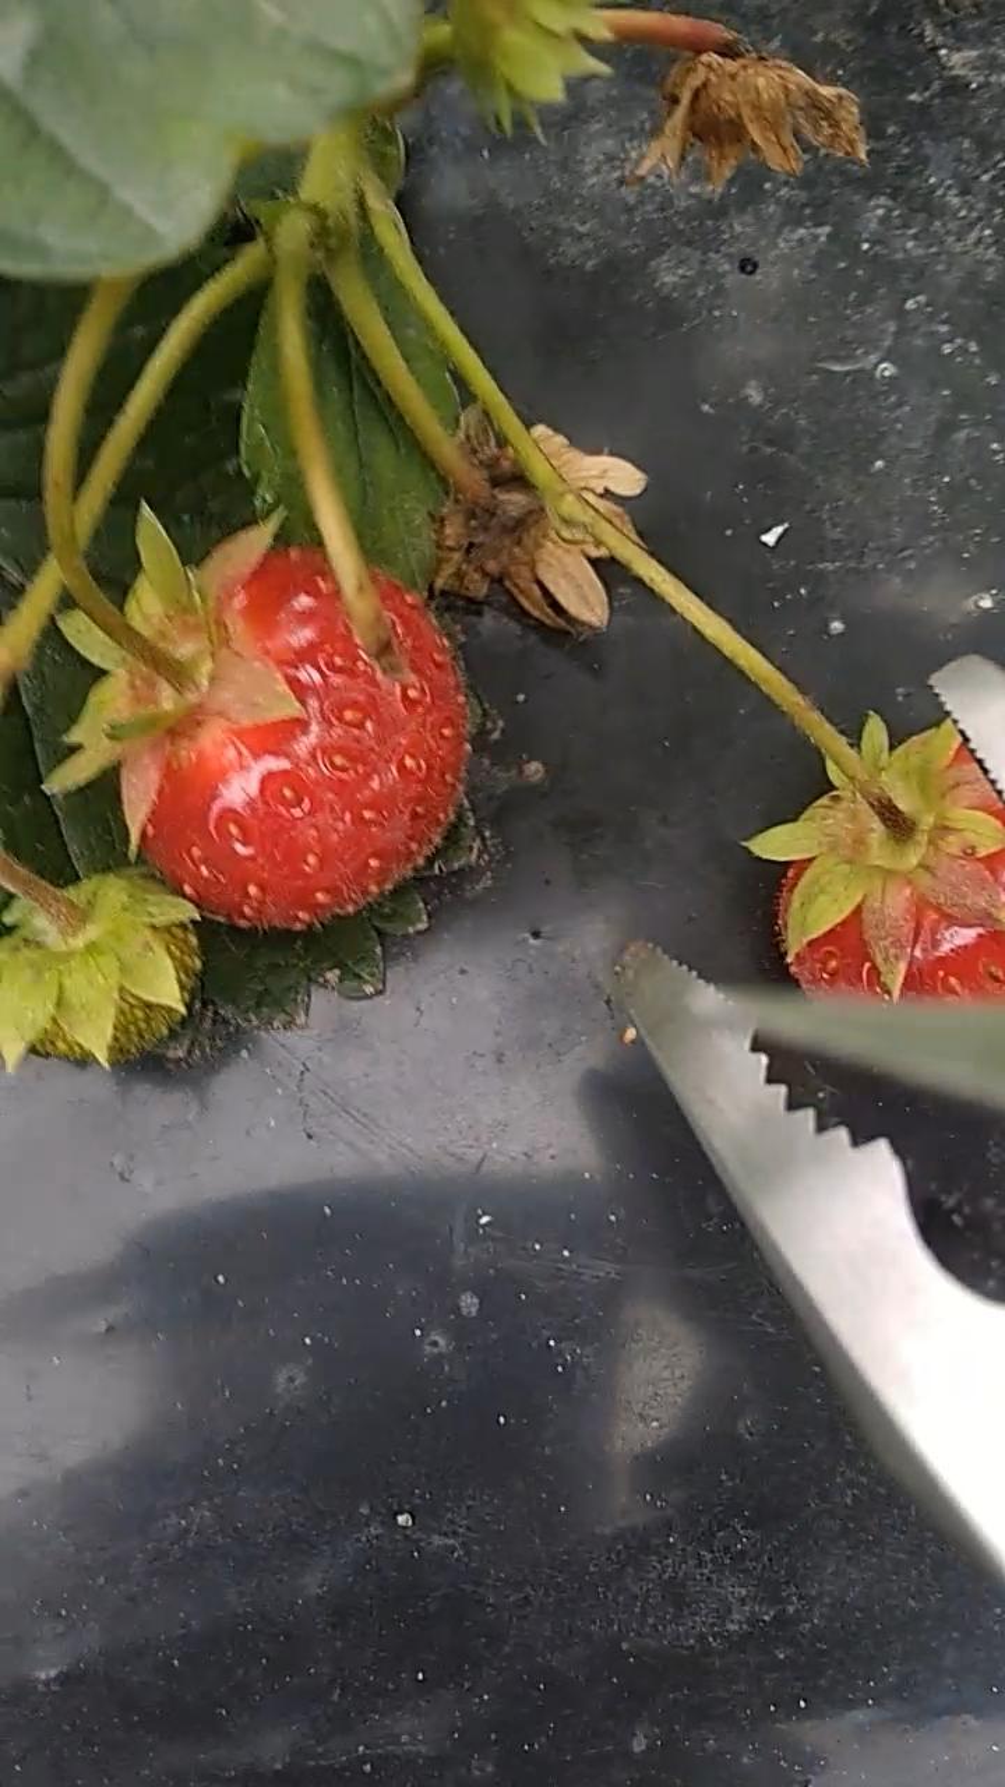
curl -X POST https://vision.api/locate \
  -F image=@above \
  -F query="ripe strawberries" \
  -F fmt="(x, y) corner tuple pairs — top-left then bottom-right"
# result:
(119, 547), (489, 930)
(784, 744), (1005, 995)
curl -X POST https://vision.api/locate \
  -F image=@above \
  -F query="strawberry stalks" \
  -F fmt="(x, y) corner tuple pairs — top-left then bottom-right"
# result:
(38, 306), (223, 755)
(676, 526), (962, 836)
